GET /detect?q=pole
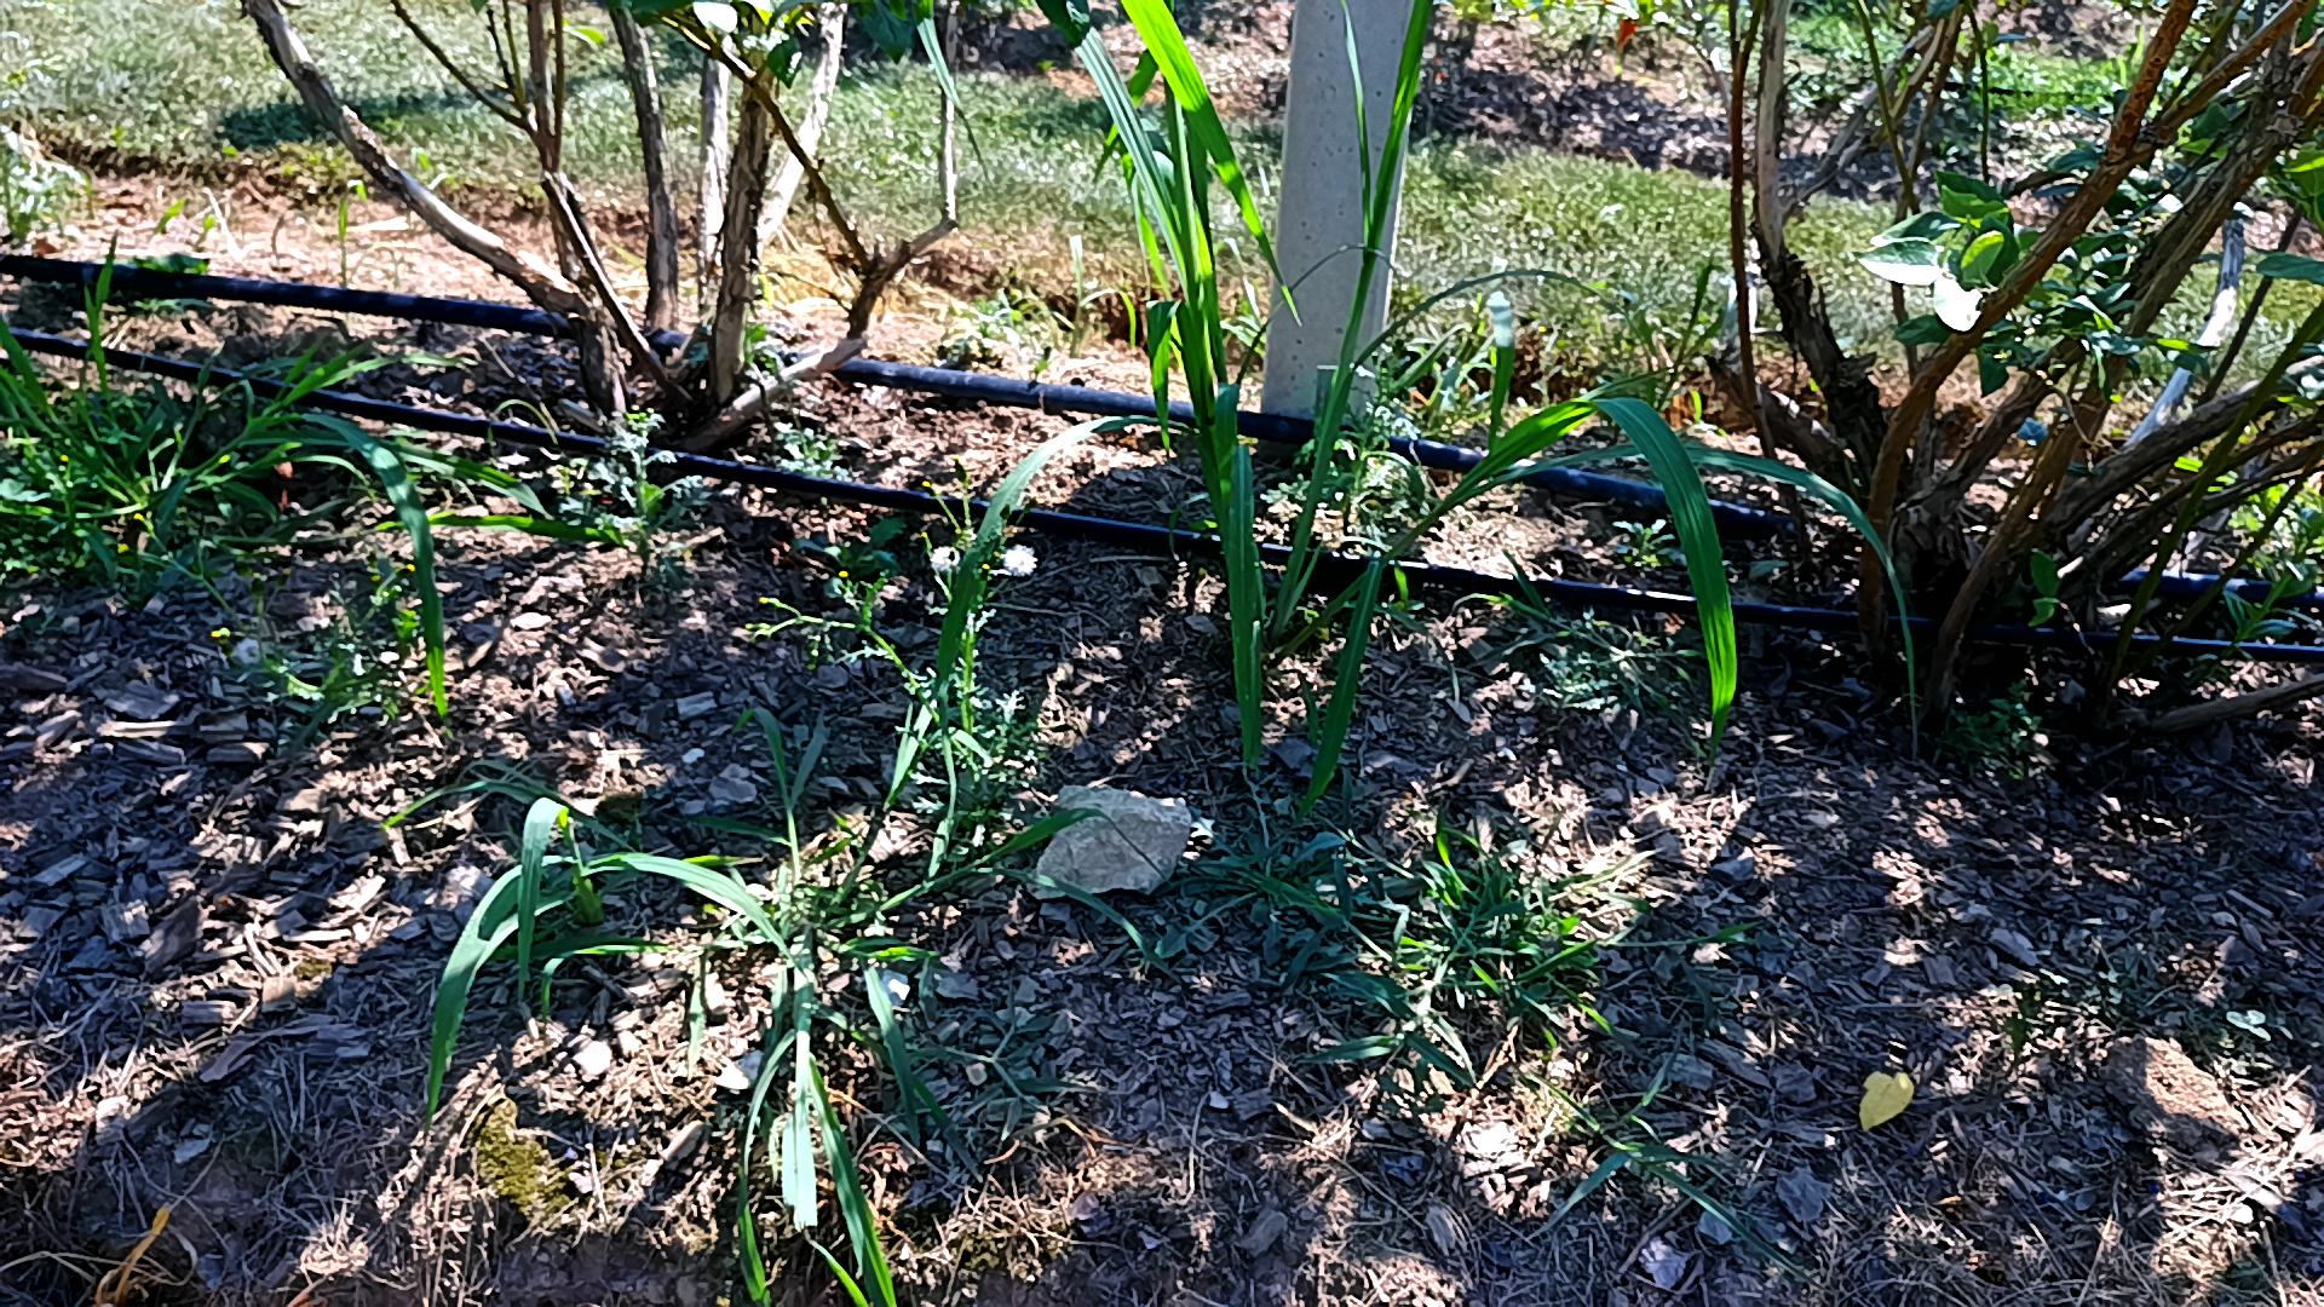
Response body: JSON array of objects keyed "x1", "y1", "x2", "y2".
[{"x1": 1221, "y1": 2, "x2": 1485, "y2": 487}]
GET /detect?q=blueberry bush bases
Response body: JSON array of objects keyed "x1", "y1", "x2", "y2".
[
  {"x1": 1661, "y1": 381, "x2": 2289, "y2": 823},
  {"x1": 435, "y1": 236, "x2": 927, "y2": 547}
]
